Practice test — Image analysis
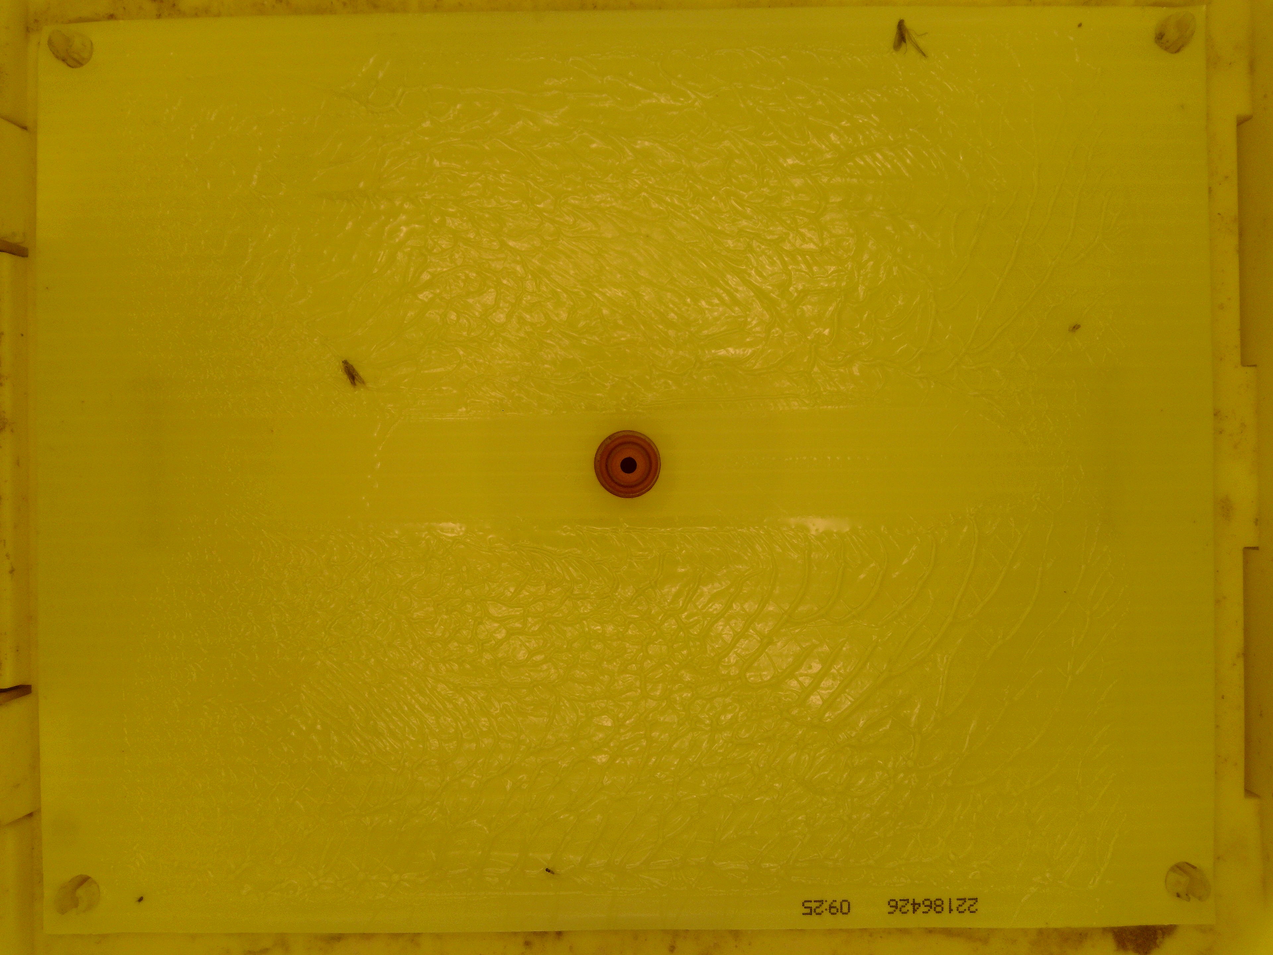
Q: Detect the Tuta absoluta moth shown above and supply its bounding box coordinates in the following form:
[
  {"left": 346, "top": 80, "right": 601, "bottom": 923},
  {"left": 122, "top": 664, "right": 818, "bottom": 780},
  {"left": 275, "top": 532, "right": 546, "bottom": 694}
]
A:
[{"left": 342, "top": 357, "right": 365, "bottom": 387}]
